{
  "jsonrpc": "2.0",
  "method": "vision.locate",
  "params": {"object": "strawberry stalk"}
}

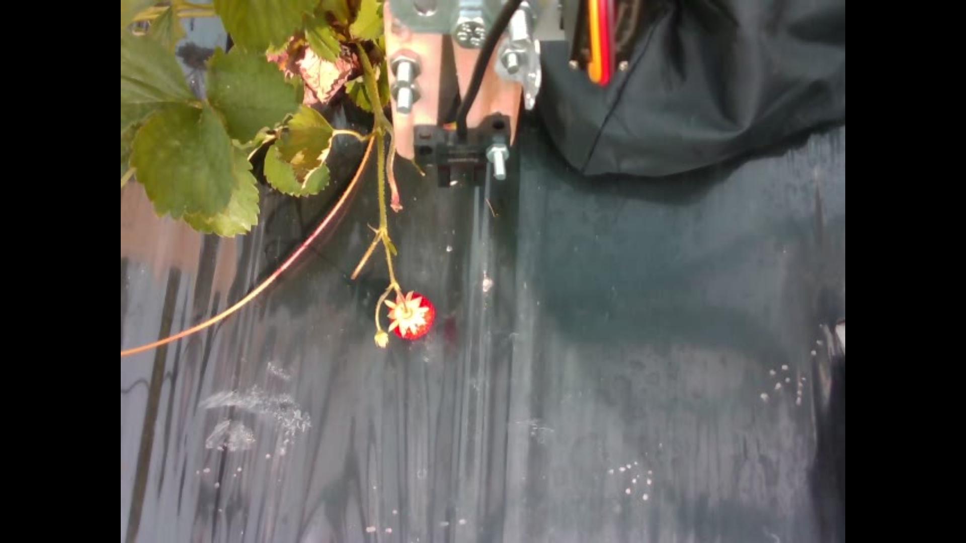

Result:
[378,234,414,319]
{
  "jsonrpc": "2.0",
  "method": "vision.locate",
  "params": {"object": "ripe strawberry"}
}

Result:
[386,293,437,353]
